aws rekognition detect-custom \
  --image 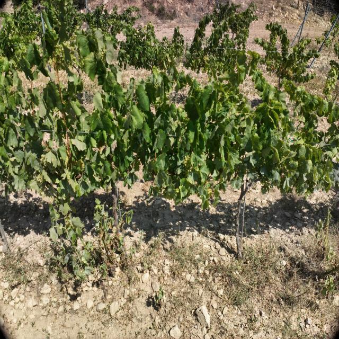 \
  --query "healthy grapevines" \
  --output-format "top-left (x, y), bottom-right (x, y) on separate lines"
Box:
top-left (181, 67), bottom-right (339, 266)
top-left (0, 73), bottom-right (180, 267)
